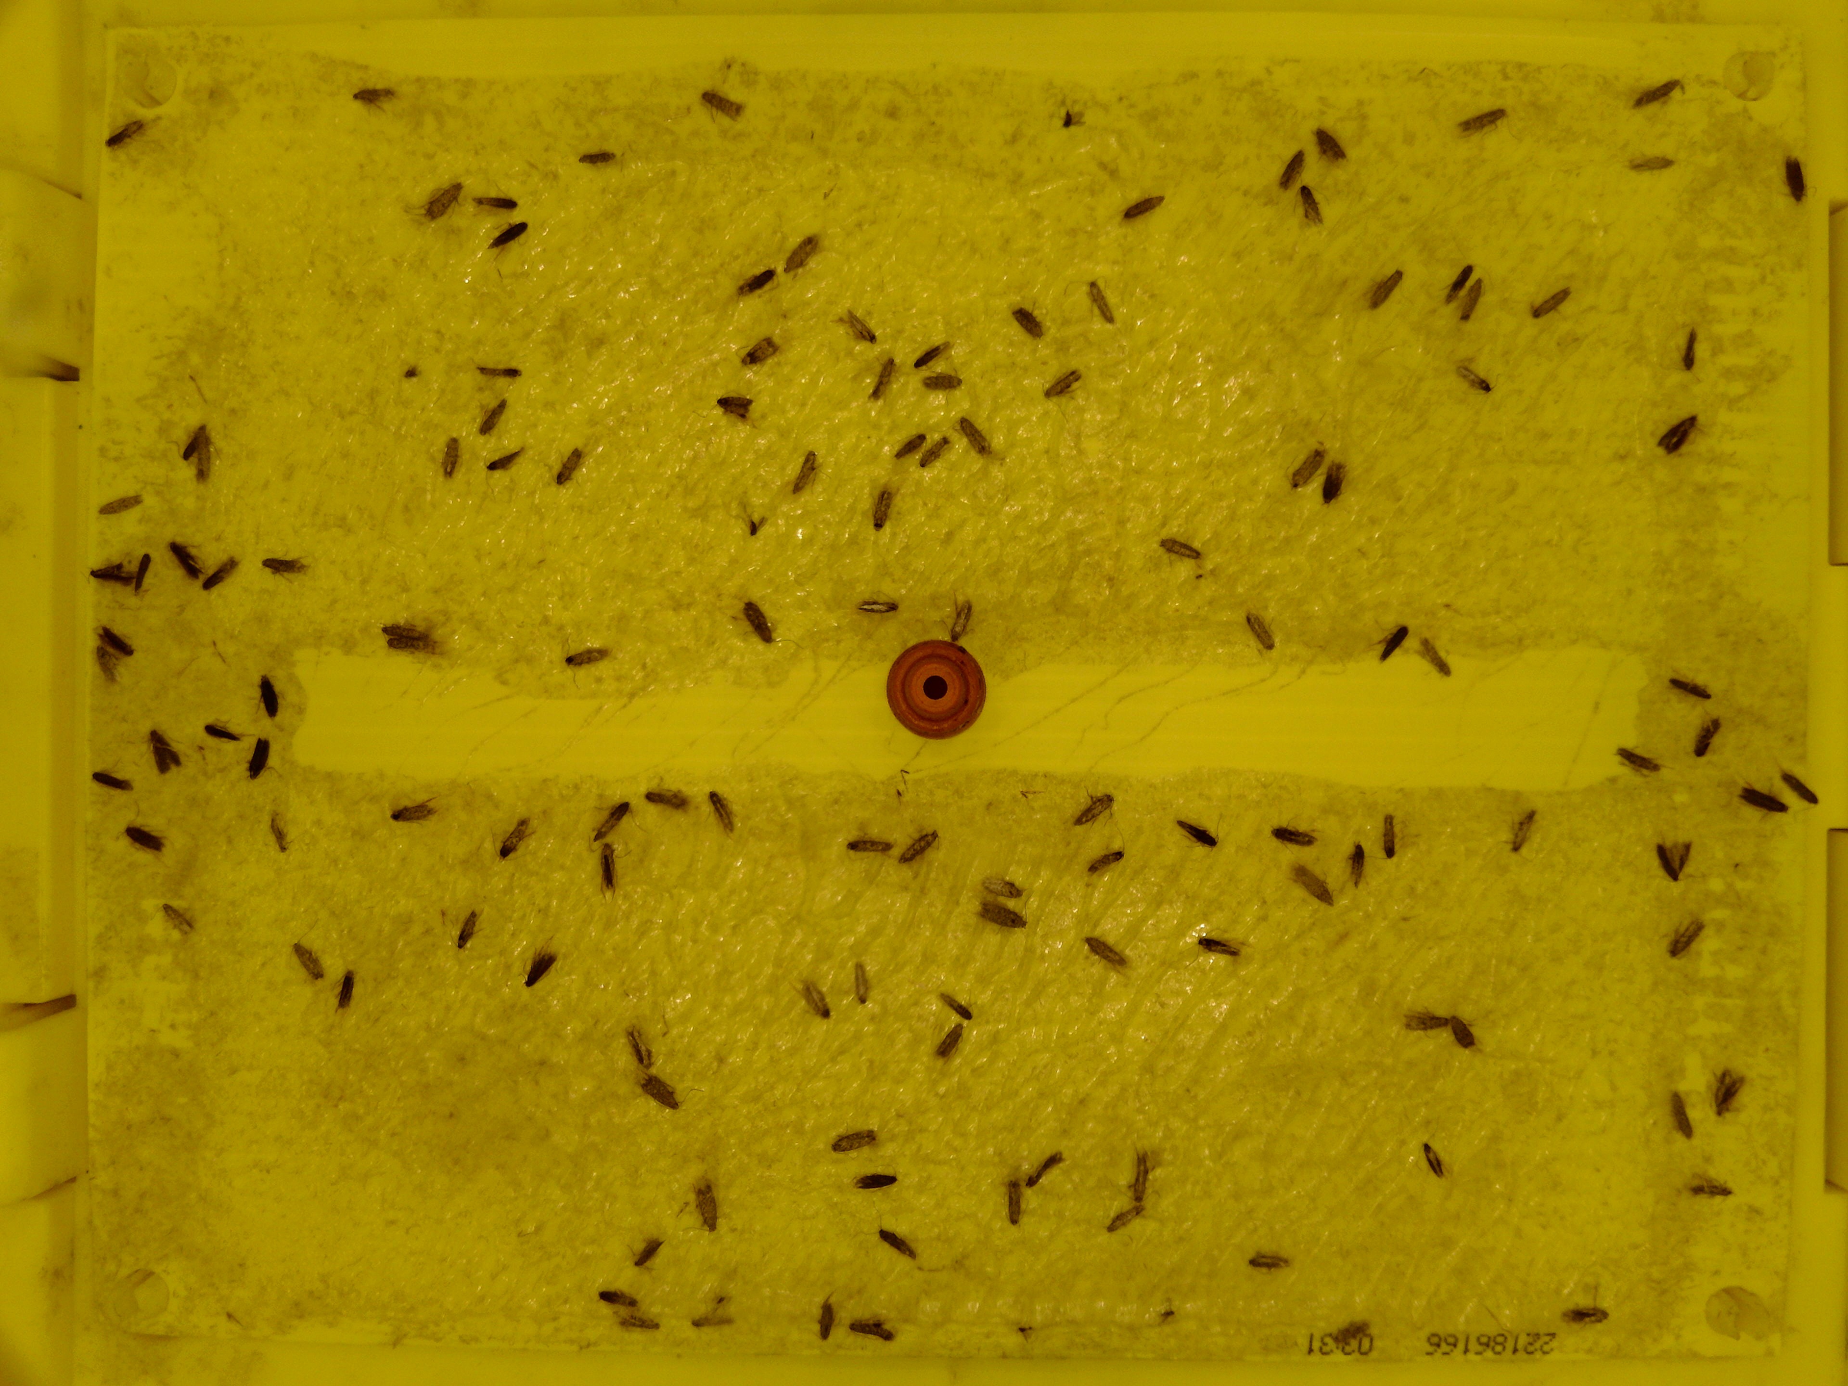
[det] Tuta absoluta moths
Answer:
[1101,1205,1149,1237]
[168,543,206,580]
[473,189,521,210]
[1414,633,1453,672]
[355,79,395,103]
[859,591,899,619]
[1667,1096,1695,1140]
[1439,260,1476,294]
[1367,266,1409,313]
[1449,105,1506,136]
[176,415,210,464]
[977,906,1029,930]
[591,799,628,846]
[1380,814,1406,863]
[794,976,835,1024]
[847,837,894,852]
[520,950,557,991]
[845,1314,898,1348]
[1459,275,1494,321]
[601,845,619,898]
[960,413,994,456]
[1562,1303,1613,1329]
[1404,1008,1476,1049]
[811,1297,838,1342]
[852,964,875,1008]
[1002,1181,1022,1224]
[1632,77,1683,110]
[391,803,437,822]
[688,1310,734,1328]
[744,332,778,366]
[1292,867,1335,907]
[156,895,192,935]
[1117,195,1163,224]
[1712,1065,1753,1124]
[1197,931,1244,960]
[719,389,756,422]
[1070,853,1132,879]
[839,307,881,344]
[502,818,526,858]
[88,561,131,587]
[691,1176,727,1238]
[1666,670,1715,693]
[1528,284,1577,320]
[632,1076,680,1113]
[921,434,948,470]
[870,486,894,533]
[1308,125,1348,160]
[568,646,614,672]
[1042,364,1086,397]
[635,1233,663,1268]
[1737,783,1783,818]
[135,549,152,599]
[597,1287,642,1308]
[1127,1150,1155,1208]
[1613,742,1667,774]
[450,906,485,954]
[89,770,132,796]
[1452,358,1494,389]
[476,395,510,438]
[706,786,736,837]
[795,444,820,494]
[869,354,897,402]
[1244,1251,1294,1270]
[202,719,246,748]
[639,786,690,816]
[1784,765,1824,807]
[900,824,942,860]
[243,731,268,780]
[469,355,526,380]
[199,556,230,595]
[613,1314,663,1333]
[826,1124,881,1153]
[699,87,744,123]
[1285,438,1326,494]
[909,339,949,363]
[290,942,329,985]
[735,267,776,298]
[258,667,283,724]
[879,1221,925,1264]
[935,1022,969,1065]
[101,622,139,661]
[96,490,145,517]
[1785,154,1812,208]
[1244,609,1279,653]
[1276,147,1308,190]
[1177,817,1220,849]
[1689,715,1723,766]
[481,448,533,474]
[849,1172,902,1195]
[1421,1137,1450,1178]
[1300,184,1324,227]
[147,730,182,783]
[1083,935,1132,976]
[486,221,532,251]
[1511,808,1540,853]
[1159,536,1204,568]
[742,595,782,647]
[260,554,309,574]
[1339,838,1374,885]
[557,440,586,486]
[920,368,964,393]
[891,426,924,461]
[1667,913,1705,963]
[338,968,358,1015]
[579,145,627,167]
[1320,463,1353,505]
[1270,822,1316,850]
[1374,622,1410,664]
[1655,412,1697,454]
[382,621,428,640]
[944,994,980,1021]
[131,816,175,857]
[1653,839,1692,878]
[949,600,977,645]
[422,178,464,224]
[784,225,822,279]
[1089,272,1114,330]
[441,432,461,482]
[1009,299,1044,338]
[1076,790,1117,828]
[103,119,141,152]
